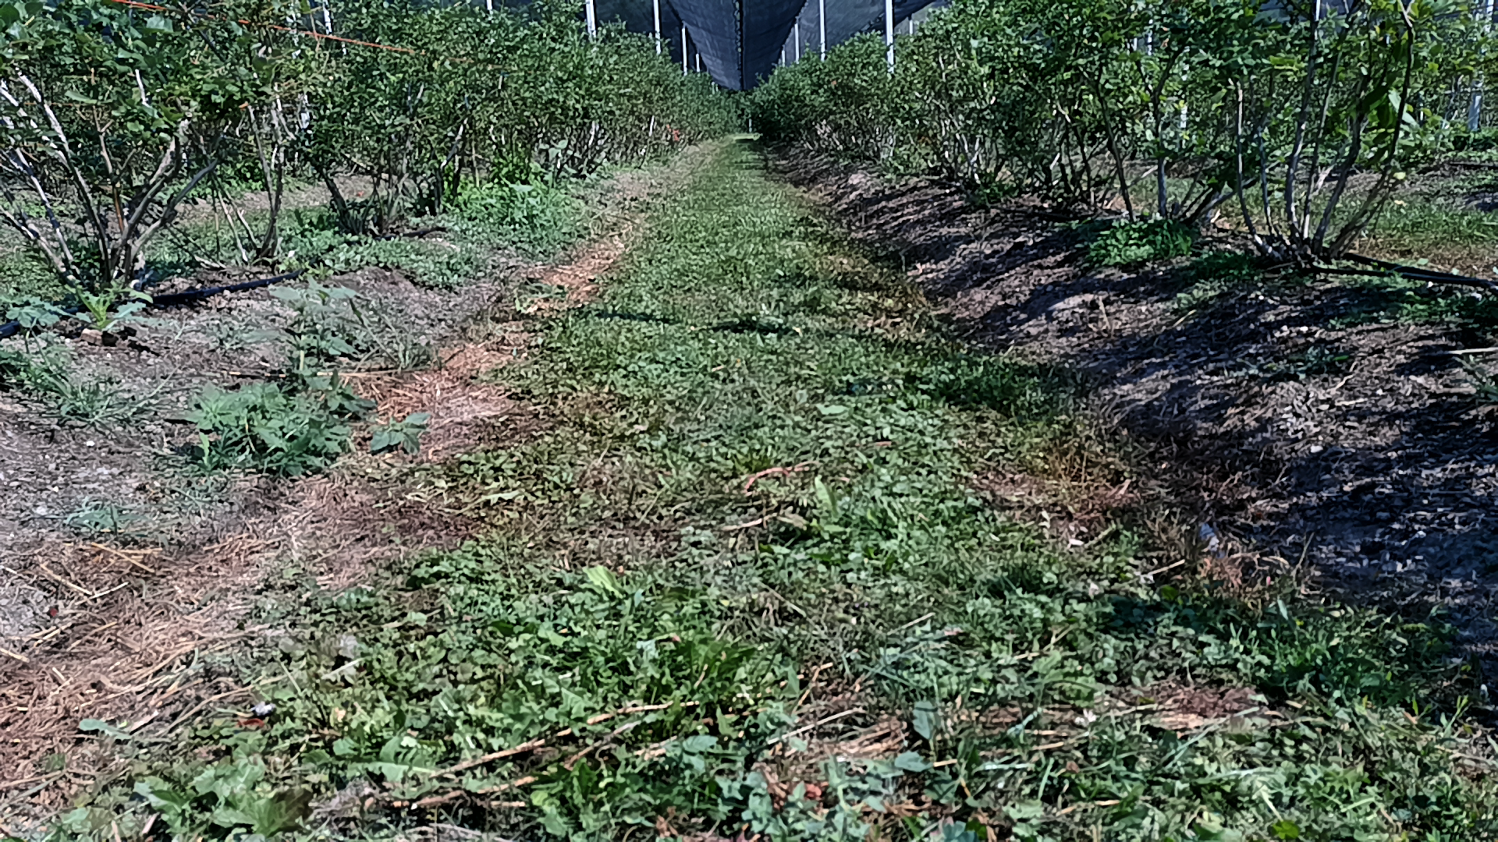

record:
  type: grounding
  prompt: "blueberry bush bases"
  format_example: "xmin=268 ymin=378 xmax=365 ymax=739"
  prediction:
xmin=1114 ymin=174 xmax=1226 ymax=266
xmin=411 ymin=157 xmax=478 ymax=235
xmin=1241 ymin=187 xmax=1393 ymax=297
xmin=164 ymin=196 xmax=304 ymax=290
xmin=325 ymin=170 xmax=460 ymax=267
xmin=1044 ymin=171 xmax=1105 ymax=228
xmin=946 ymin=150 xmax=1010 ymax=201
xmin=16 ymin=210 xmax=183 ymax=338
